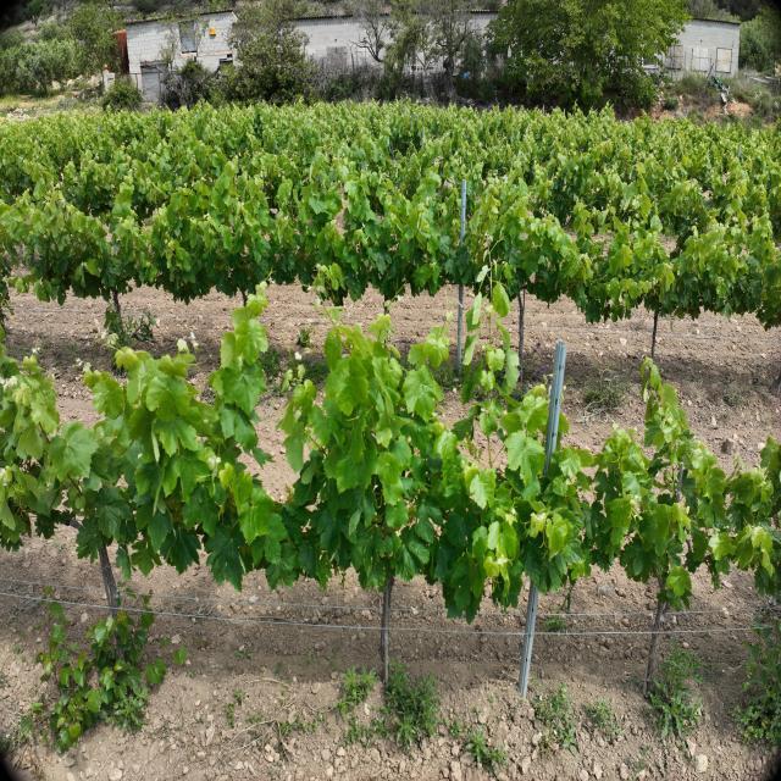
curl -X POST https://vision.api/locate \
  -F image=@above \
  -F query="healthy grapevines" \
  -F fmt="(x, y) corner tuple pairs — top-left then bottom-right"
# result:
(236, 293), (540, 710)
(0, 275), (286, 677)
(481, 386), (781, 718)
